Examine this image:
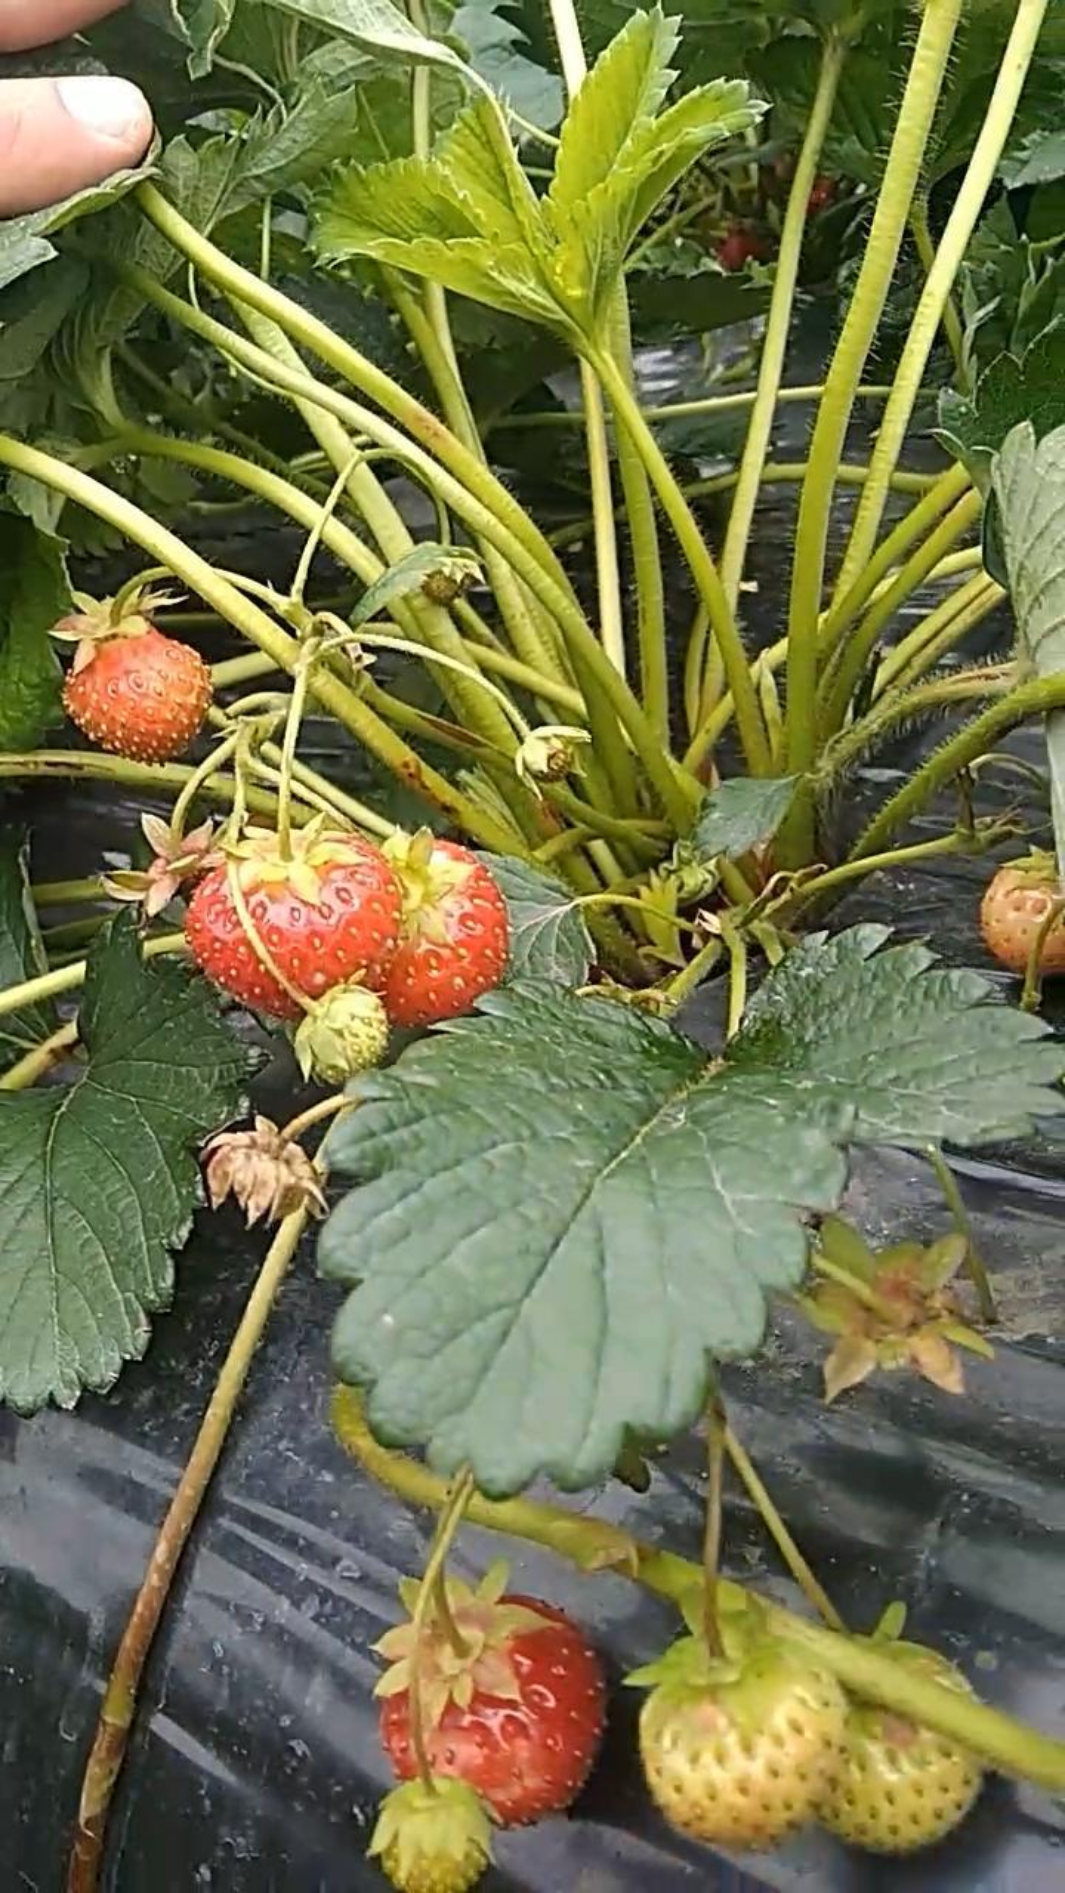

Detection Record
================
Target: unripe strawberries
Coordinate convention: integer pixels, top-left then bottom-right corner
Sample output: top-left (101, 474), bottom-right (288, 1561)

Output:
top-left (631, 1642), bottom-right (854, 1859)
top-left (973, 841), bottom-right (1065, 973)
top-left (827, 1628), bottom-right (993, 1861)
top-left (345, 1772), bottom-right (504, 1886)
top-left (288, 974), bottom-right (404, 1086)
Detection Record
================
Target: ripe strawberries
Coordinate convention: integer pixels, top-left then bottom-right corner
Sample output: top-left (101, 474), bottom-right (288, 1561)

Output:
top-left (375, 841), bottom-right (526, 1035)
top-left (175, 837), bottom-right (402, 998)
top-left (369, 1599), bottom-right (603, 1818)
top-left (41, 643), bottom-right (230, 762)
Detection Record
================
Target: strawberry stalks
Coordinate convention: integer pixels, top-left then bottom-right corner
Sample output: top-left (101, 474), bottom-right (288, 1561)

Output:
top-left (249, 964), bottom-right (339, 1032)
top-left (770, 1506), bottom-right (869, 1664)
top-left (257, 676), bottom-right (314, 918)
top-left (70, 561), bottom-right (288, 685)
top-left (409, 1434), bottom-right (493, 1675)
top-left (678, 1483), bottom-right (742, 1685)
top-left (385, 1692), bottom-right (459, 1819)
